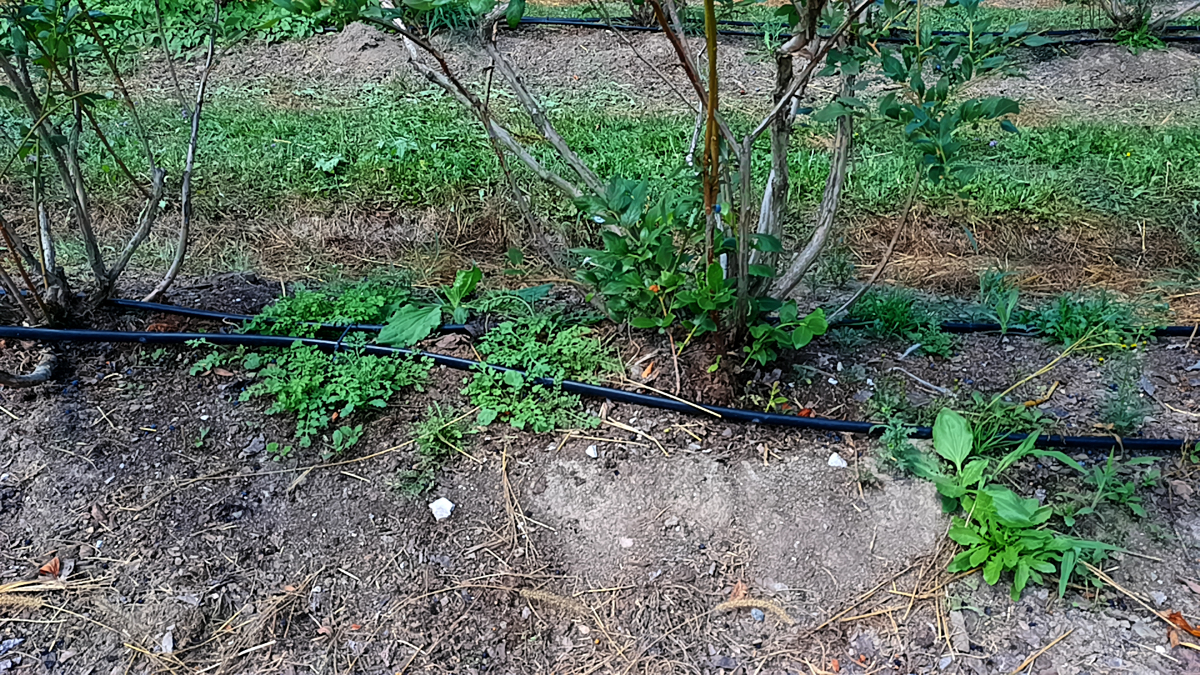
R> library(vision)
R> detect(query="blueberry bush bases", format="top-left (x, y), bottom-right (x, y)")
top-left (0, 187), bottom-right (202, 368)
top-left (524, 155), bottom-right (889, 447)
